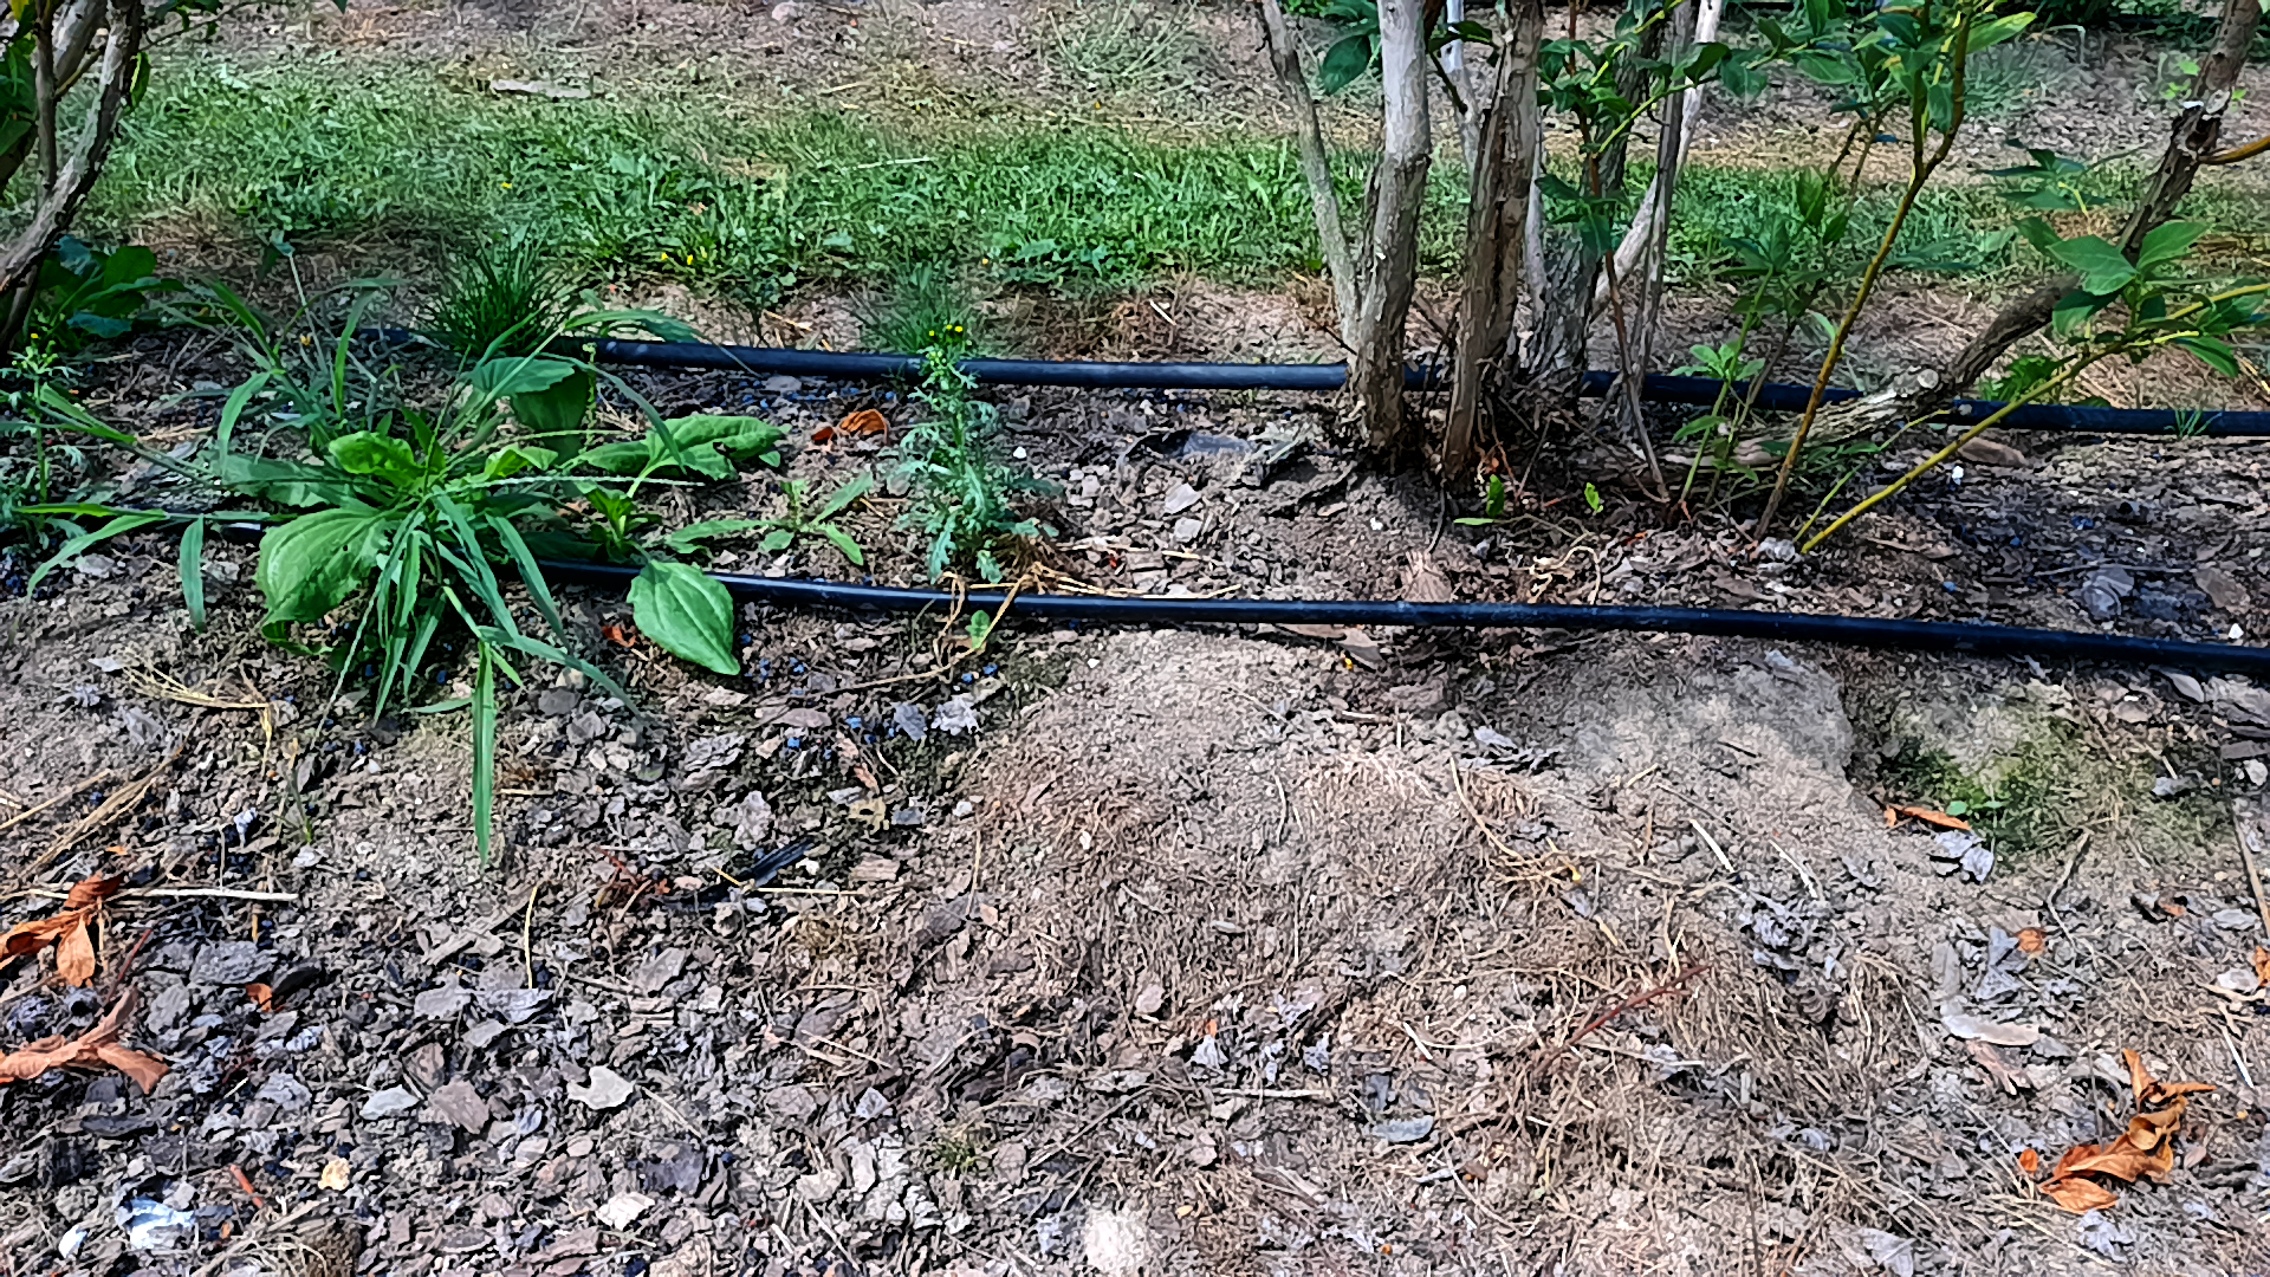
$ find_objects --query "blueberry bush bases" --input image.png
[5,59,179,485]
[1253,108,2031,628]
